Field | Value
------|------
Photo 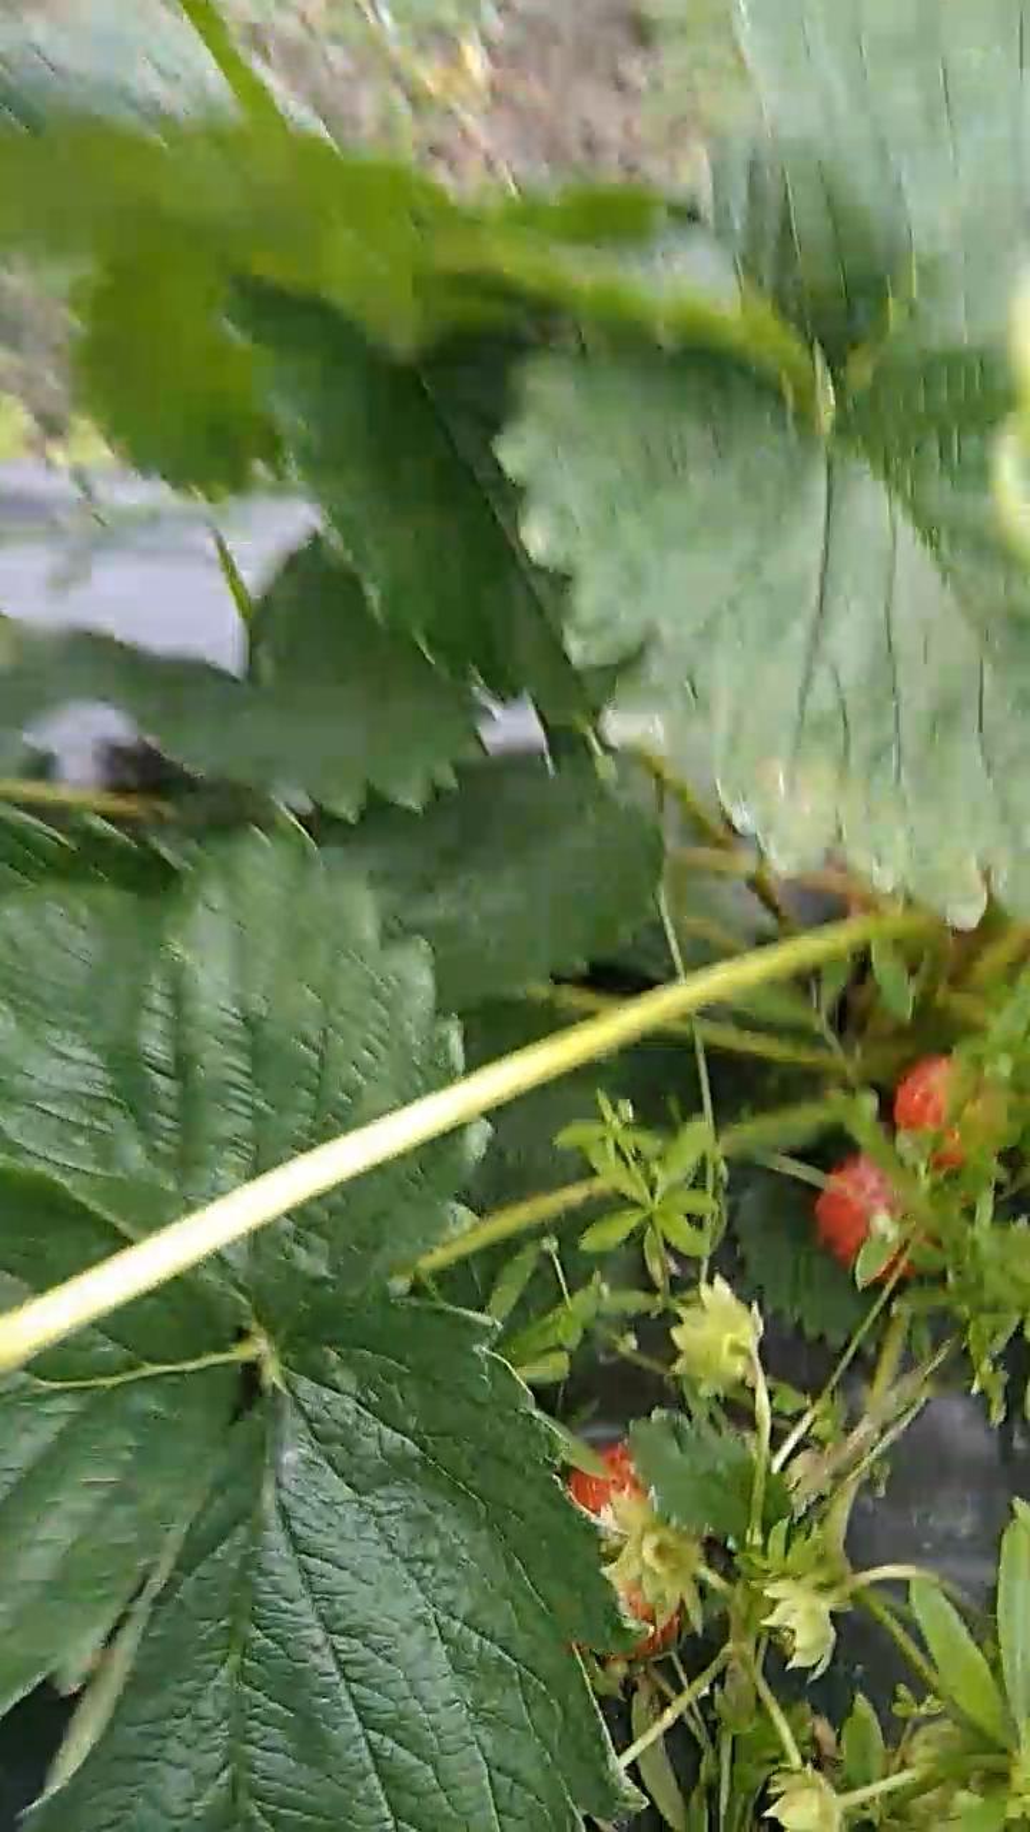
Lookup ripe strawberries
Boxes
[891,1044,953,1159]
[554,1429,715,1675]
[811,1154,883,1270]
